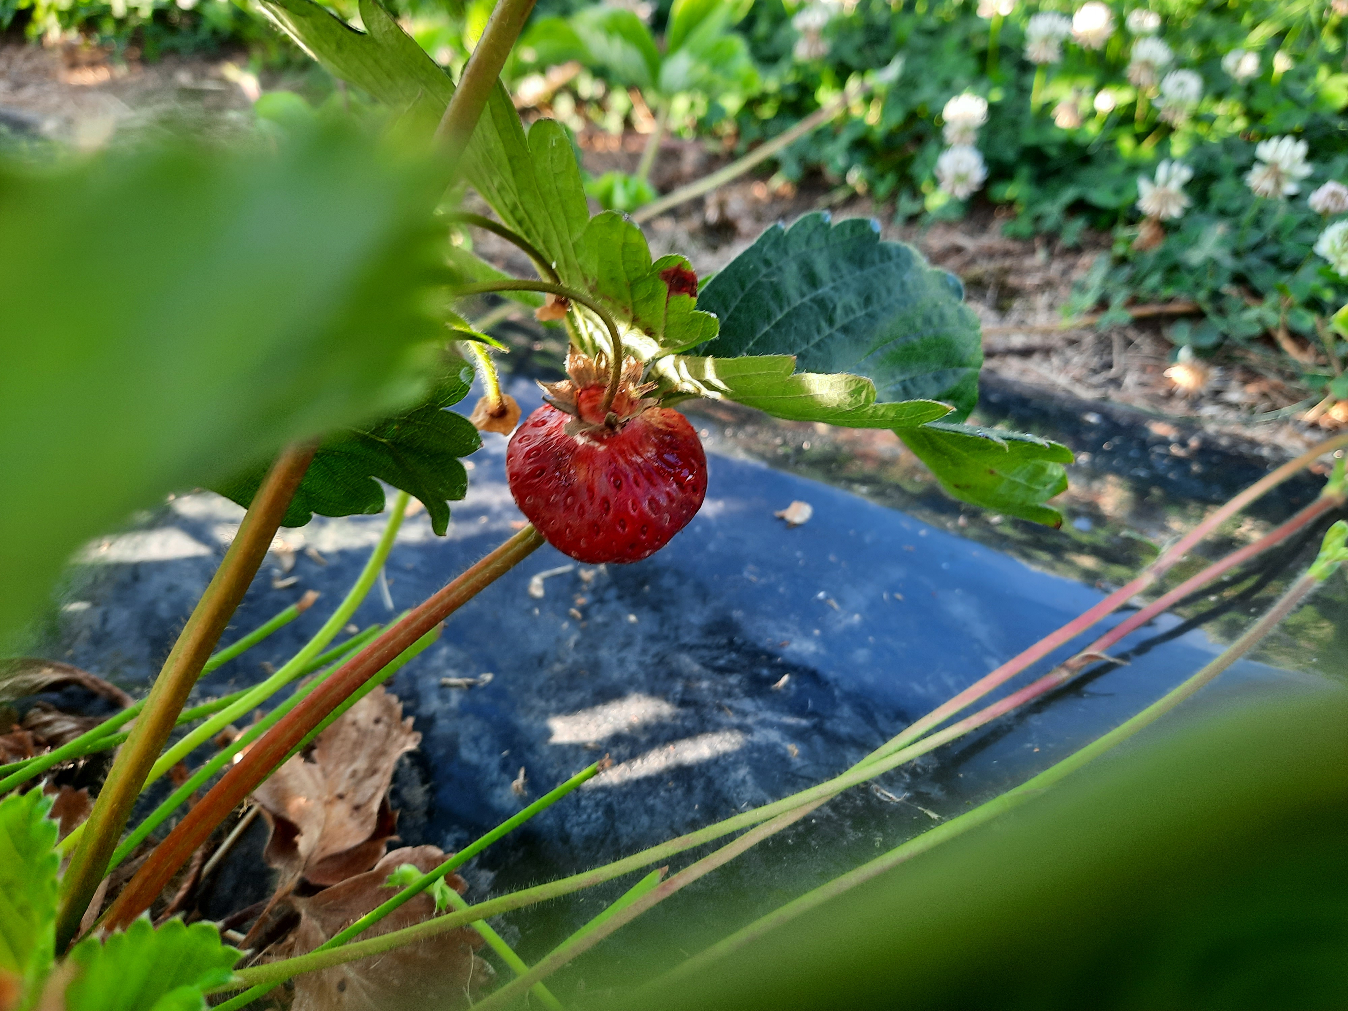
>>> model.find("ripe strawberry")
[514,399,685,561]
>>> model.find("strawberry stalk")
[516,289,640,442]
